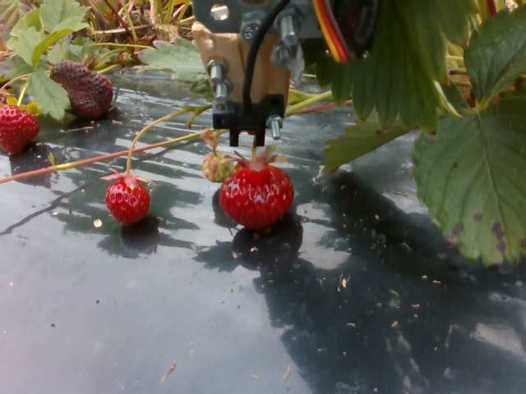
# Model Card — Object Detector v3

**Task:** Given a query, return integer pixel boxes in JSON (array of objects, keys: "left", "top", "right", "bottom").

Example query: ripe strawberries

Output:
[
  {"left": 108, "top": 178, "right": 150, "bottom": 227},
  {"left": 218, "top": 159, "right": 291, "bottom": 231},
  {"left": 2, "top": 99, "right": 39, "bottom": 152}
]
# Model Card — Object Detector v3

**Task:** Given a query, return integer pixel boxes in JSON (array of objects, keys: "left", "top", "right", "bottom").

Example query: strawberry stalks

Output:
[
  {"left": 246, "top": 128, "right": 264, "bottom": 175},
  {"left": 115, "top": 120, "right": 157, "bottom": 189},
  {"left": 11, "top": 66, "right": 37, "bottom": 119}
]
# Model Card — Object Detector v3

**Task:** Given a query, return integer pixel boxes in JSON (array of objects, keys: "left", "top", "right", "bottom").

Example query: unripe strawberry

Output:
[{"left": 204, "top": 154, "right": 229, "bottom": 180}]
